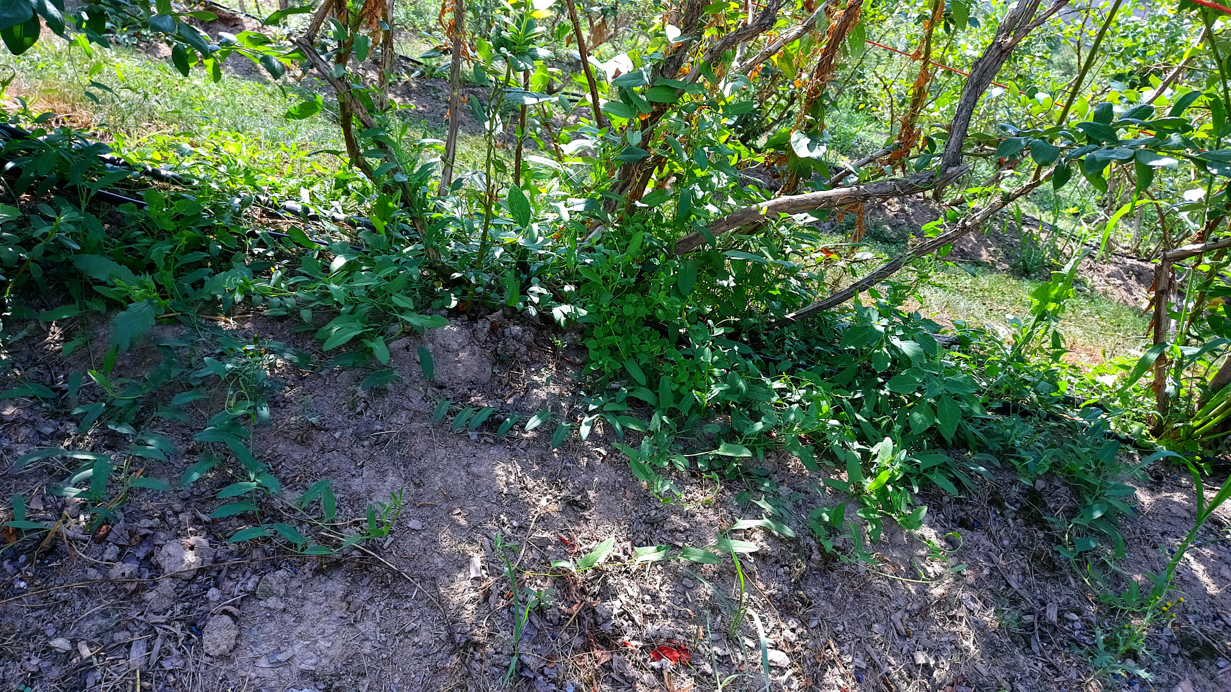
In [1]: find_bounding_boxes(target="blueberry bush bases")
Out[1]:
[333,152,876,430]
[1125,330,1231,510]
